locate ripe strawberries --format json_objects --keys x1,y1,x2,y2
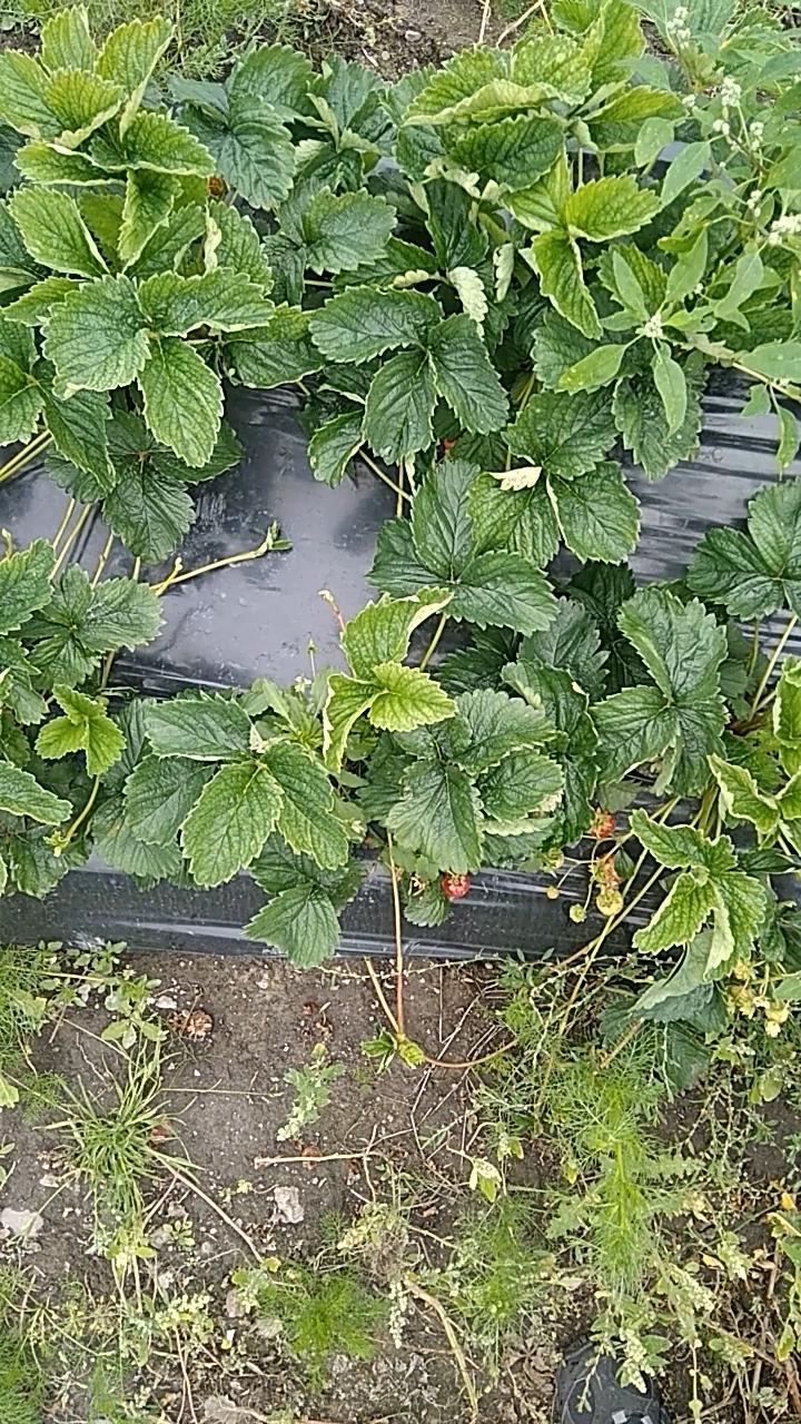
[
  {"x1": 436, "y1": 861, "x2": 471, "y2": 908},
  {"x1": 592, "y1": 810, "x2": 618, "y2": 846}
]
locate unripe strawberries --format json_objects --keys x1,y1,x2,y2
[
  {"x1": 595, "y1": 892, "x2": 625, "y2": 917},
  {"x1": 546, "y1": 883, "x2": 559, "y2": 900},
  {"x1": 566, "y1": 901, "x2": 586, "y2": 924},
  {"x1": 763, "y1": 1008, "x2": 792, "y2": 1023}
]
